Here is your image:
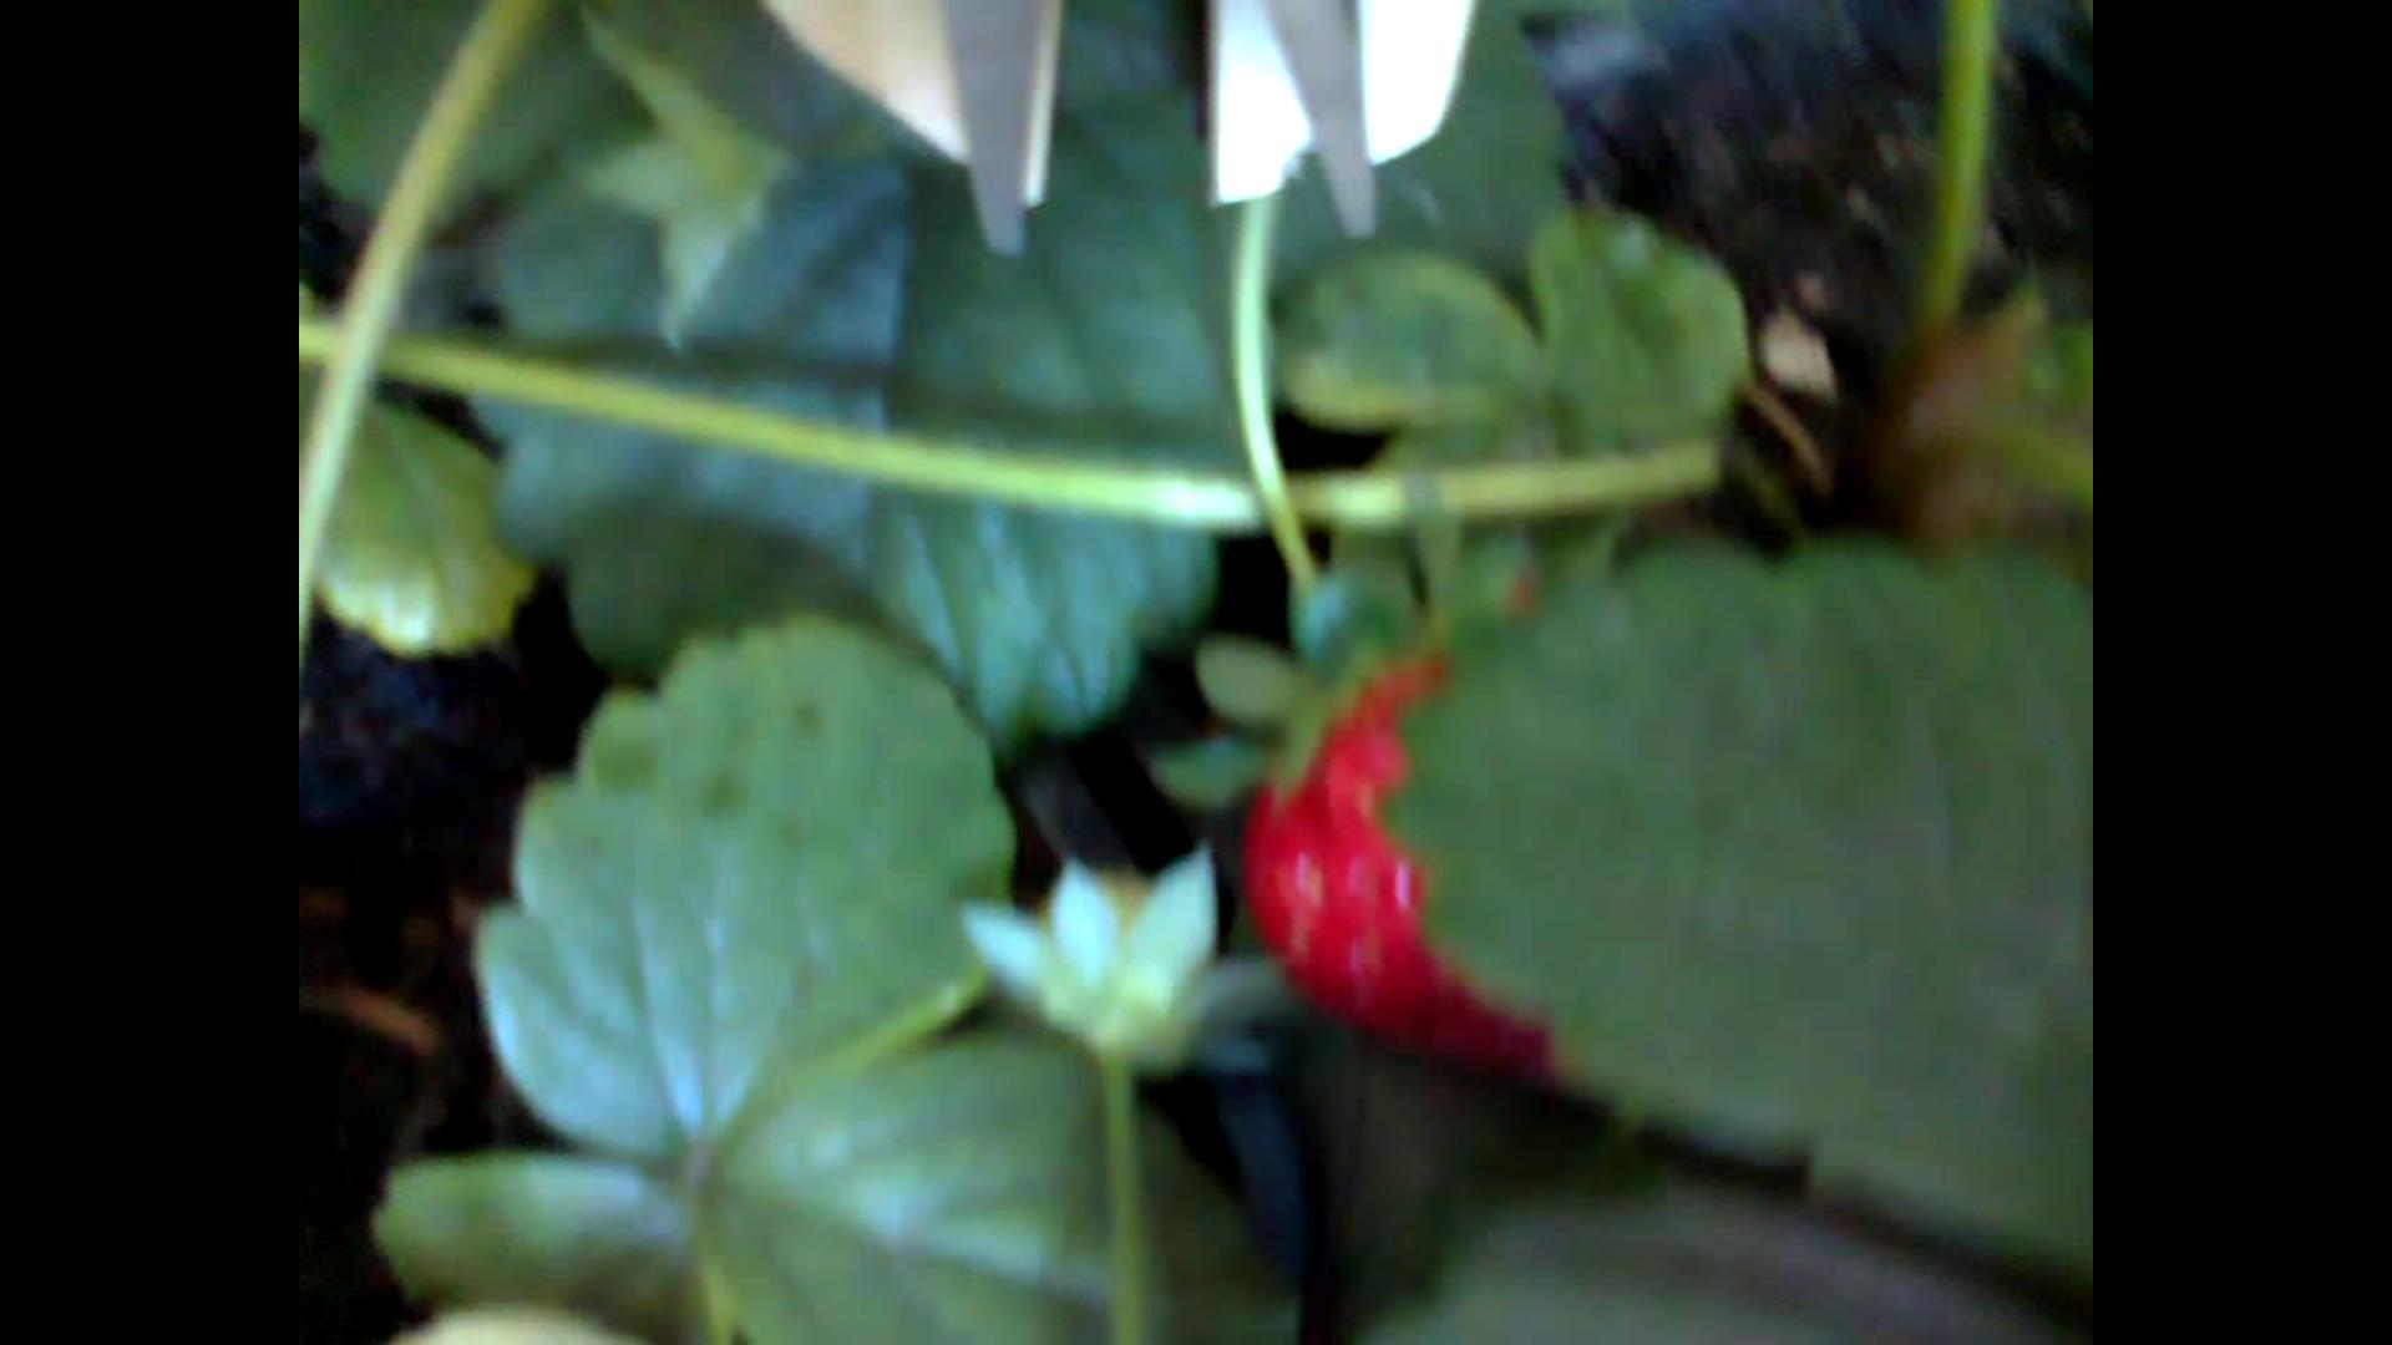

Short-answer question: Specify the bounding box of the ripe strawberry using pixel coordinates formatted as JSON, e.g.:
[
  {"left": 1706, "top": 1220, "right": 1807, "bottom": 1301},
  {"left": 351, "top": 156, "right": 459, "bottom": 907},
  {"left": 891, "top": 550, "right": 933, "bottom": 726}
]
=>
[{"left": 1193, "top": 611, "right": 1669, "bottom": 1093}]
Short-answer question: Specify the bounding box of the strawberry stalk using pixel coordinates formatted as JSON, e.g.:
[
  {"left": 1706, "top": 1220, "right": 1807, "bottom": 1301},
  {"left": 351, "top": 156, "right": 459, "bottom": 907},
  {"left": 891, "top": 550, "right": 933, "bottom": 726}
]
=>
[{"left": 1199, "top": 235, "right": 1441, "bottom": 765}]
